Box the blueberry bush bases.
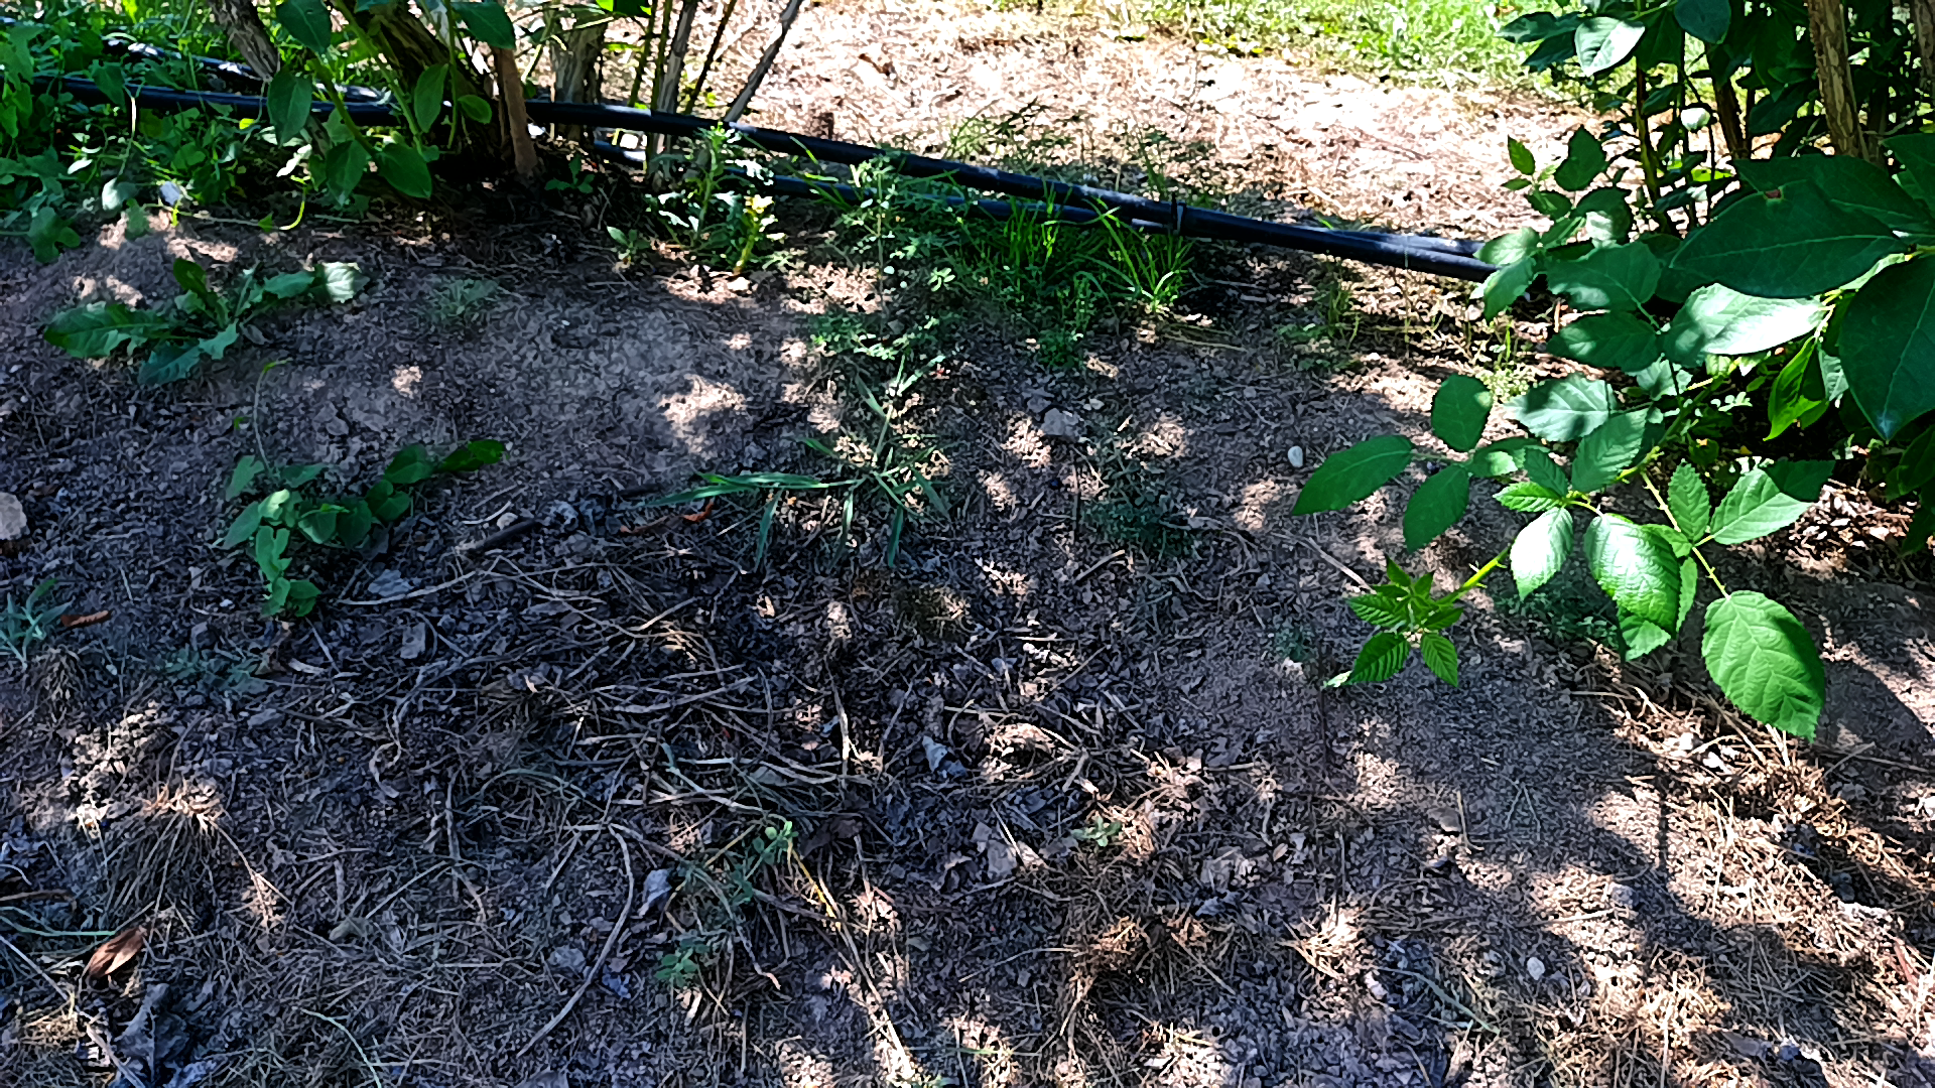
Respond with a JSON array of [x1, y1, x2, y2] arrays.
[[208, 2, 802, 316], [1630, 5, 1934, 575]]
